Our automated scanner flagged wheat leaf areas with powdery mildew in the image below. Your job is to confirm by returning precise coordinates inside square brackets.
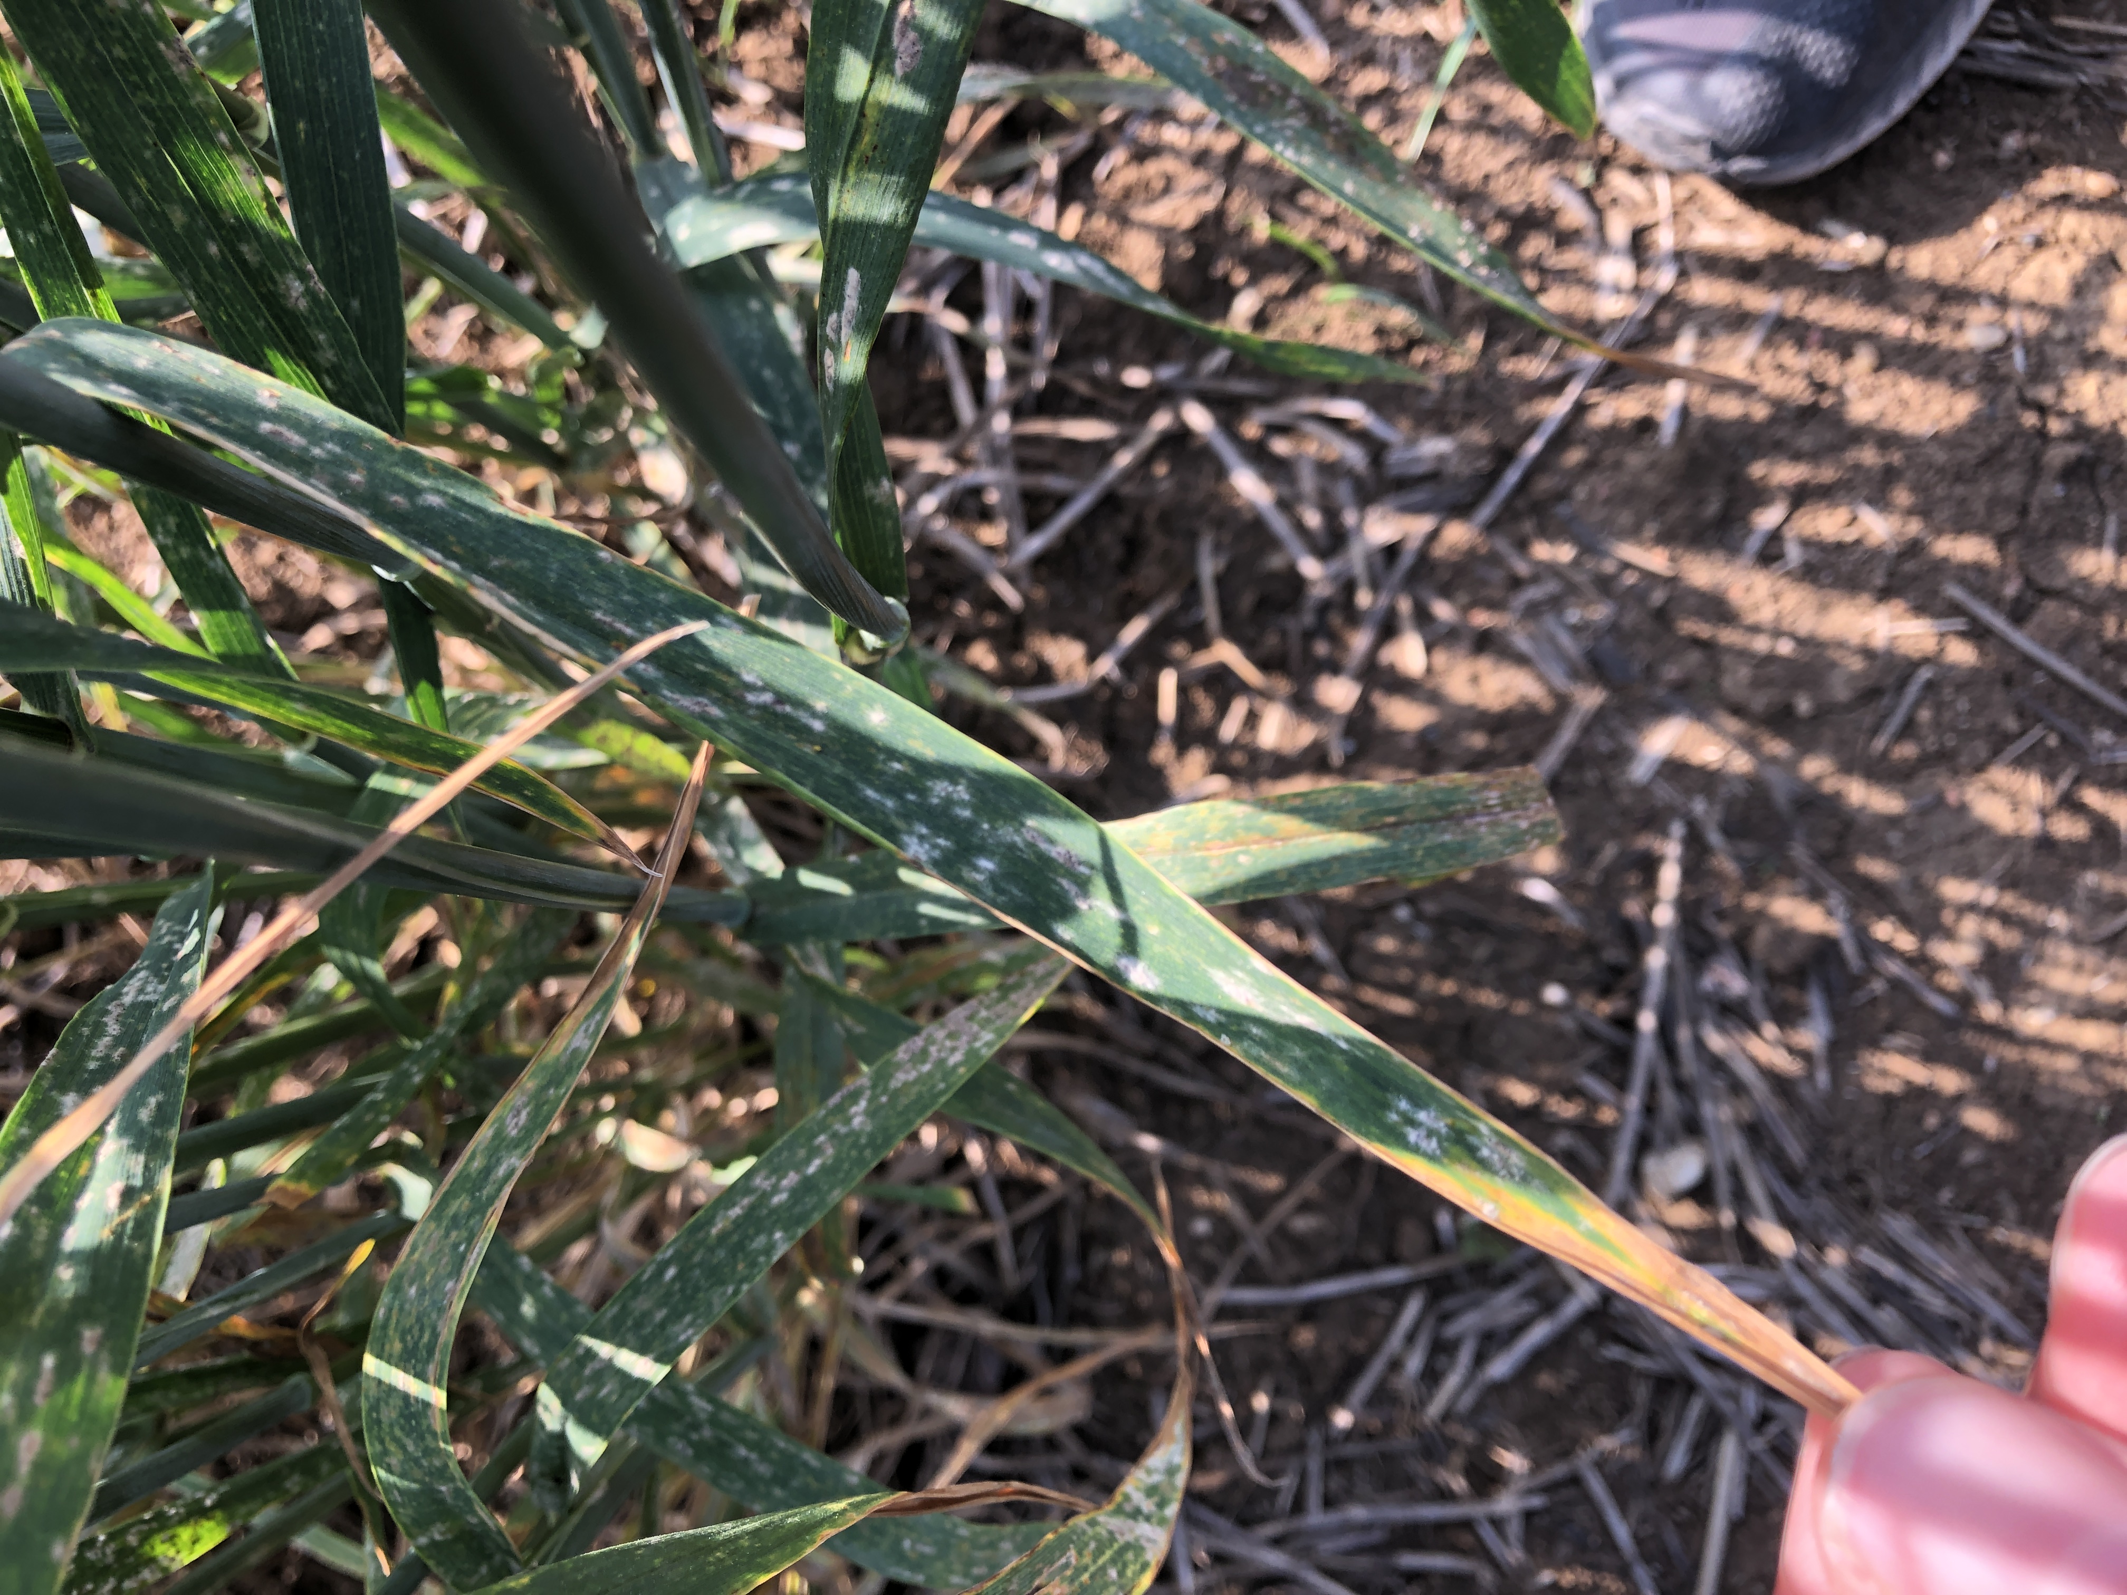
[1077, 0, 1528, 338]
[1, 877, 218, 1557]
[4, 177, 74, 262]
[65, 1352, 338, 1594]
[4, 0, 397, 420]
[813, 0, 1015, 523]
[323, 915, 514, 1164]
[496, 945, 1065, 1481]
[1018, 1299, 1223, 1594]
[473, 1264, 1144, 1594]
[581, 1466, 866, 1594]
[332, 830, 684, 1572]
[21, 312, 1525, 1270]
